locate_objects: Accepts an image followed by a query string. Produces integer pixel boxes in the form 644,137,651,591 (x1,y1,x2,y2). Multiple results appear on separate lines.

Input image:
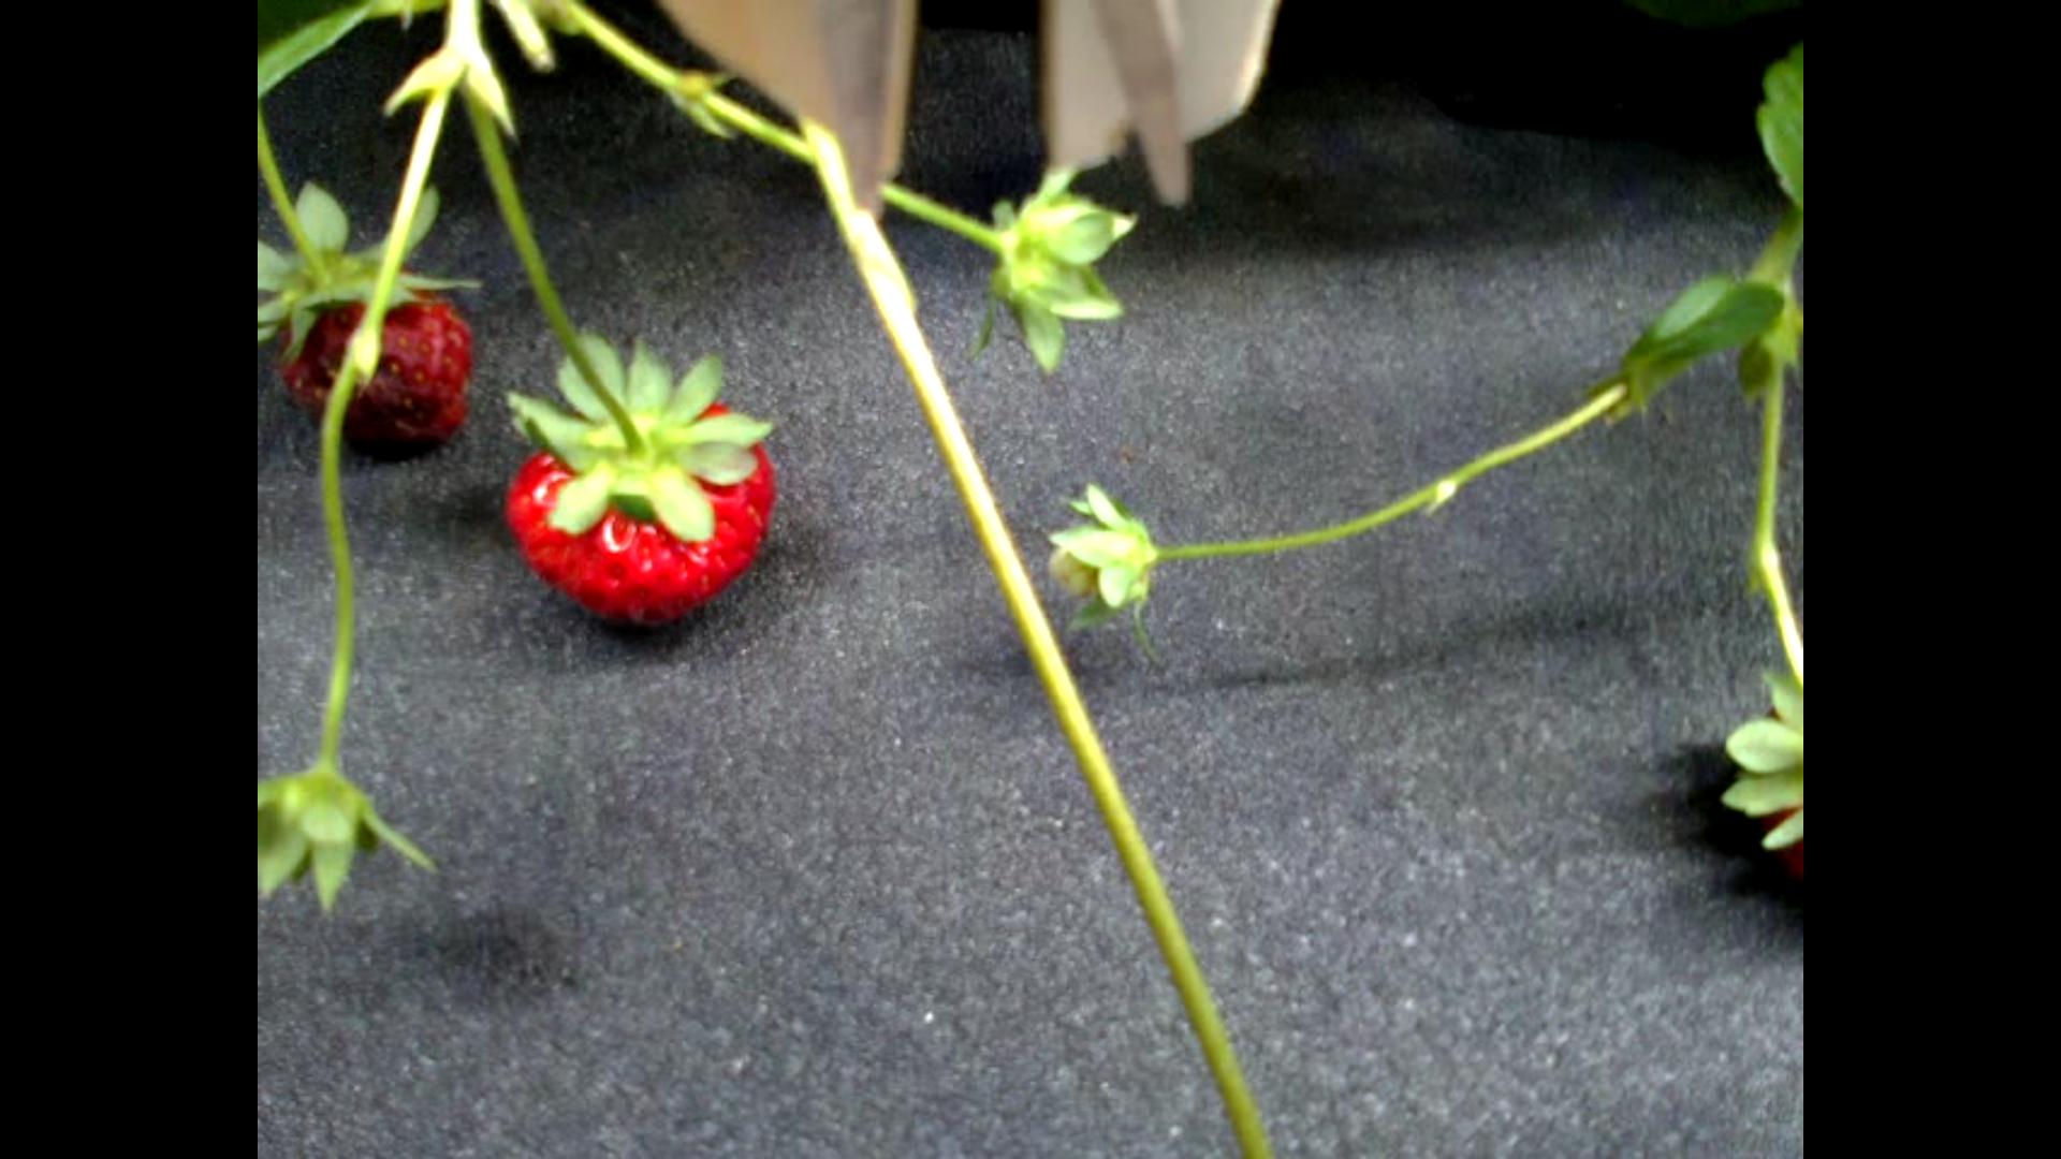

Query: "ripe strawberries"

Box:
290,284,488,480
508,365,794,630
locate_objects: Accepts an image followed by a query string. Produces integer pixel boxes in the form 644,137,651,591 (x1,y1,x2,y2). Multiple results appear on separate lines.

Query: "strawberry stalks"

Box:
298,526,369,806
887,161,1041,274
462,148,667,495
1744,522,1795,744
1131,492,1322,582
257,151,359,320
